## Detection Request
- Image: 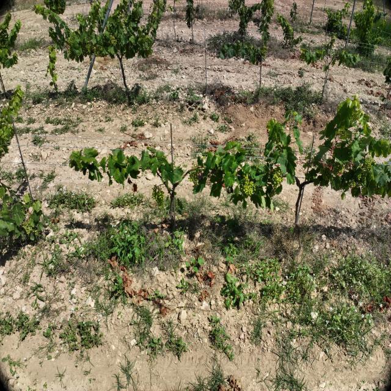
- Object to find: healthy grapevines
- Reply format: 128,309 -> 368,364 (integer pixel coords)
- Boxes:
70,135 -> 257,239
248,93 -> 391,240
